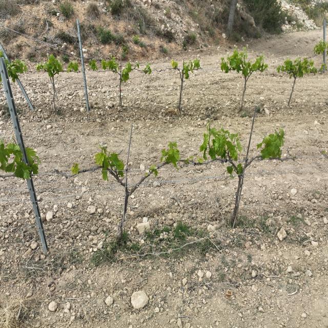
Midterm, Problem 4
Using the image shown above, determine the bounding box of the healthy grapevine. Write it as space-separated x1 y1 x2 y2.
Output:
193 121 289 238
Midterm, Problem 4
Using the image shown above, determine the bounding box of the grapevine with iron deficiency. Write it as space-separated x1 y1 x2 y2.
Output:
55 139 191 251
